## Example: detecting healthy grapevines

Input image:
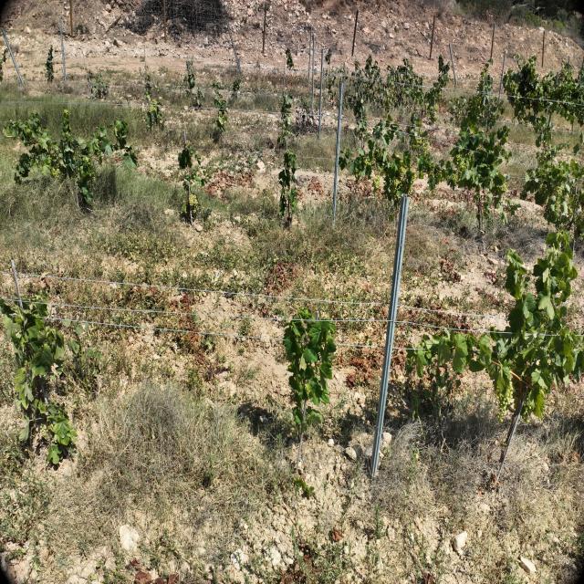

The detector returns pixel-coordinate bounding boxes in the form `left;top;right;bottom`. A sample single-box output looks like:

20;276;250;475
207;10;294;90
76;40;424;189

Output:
276;307;339;484
0;277;83;482
399;227;584;477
